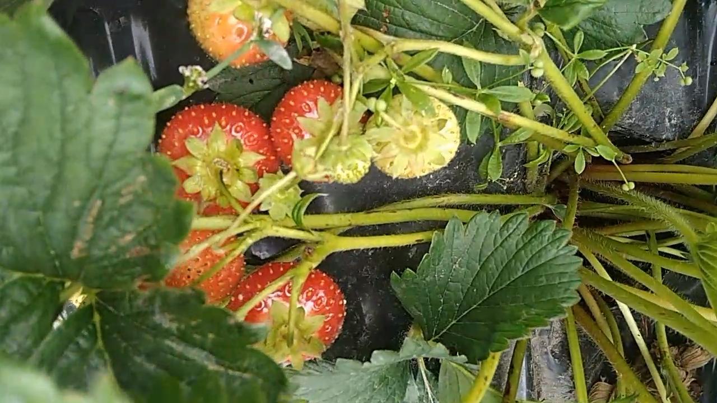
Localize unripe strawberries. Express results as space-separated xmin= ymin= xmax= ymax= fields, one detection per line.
xmin=366 ymin=93 xmax=461 ymax=179
xmin=177 ymin=0 xmax=293 ymax=72
xmin=377 ymin=102 xmax=428 ymax=155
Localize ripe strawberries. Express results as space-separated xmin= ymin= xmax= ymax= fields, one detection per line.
xmin=144 ymin=220 xmax=241 ymax=302
xmin=233 ymin=266 xmax=349 ymax=365
xmin=148 ymin=99 xmax=276 ymax=220
xmin=272 ymin=76 xmax=367 ymax=183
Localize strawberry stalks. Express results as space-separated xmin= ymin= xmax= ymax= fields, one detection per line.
xmin=308 ymin=51 xmax=354 ymax=158
xmin=265 ymin=263 xmax=314 ymax=362
xmin=214 ymin=172 xmax=264 ymax=222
